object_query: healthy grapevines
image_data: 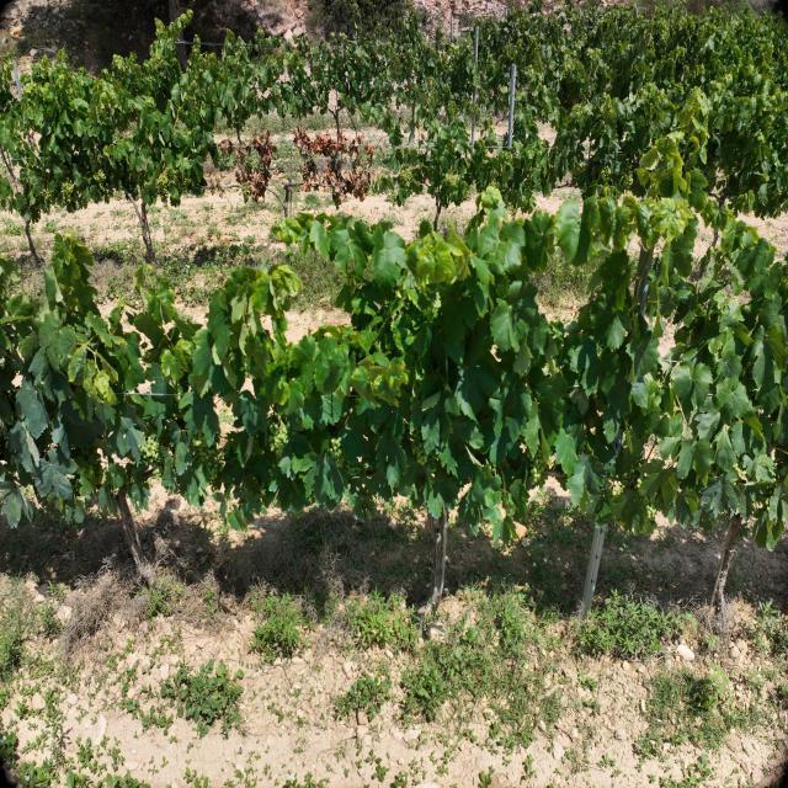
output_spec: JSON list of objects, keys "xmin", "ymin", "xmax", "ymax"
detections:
[
  {"xmin": 560, "ymin": 169, "xmax": 788, "ymax": 654},
  {"xmin": 283, "ymin": 199, "xmax": 594, "ymax": 641},
  {"xmin": 0, "ymin": 263, "xmax": 303, "ymax": 609}
]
